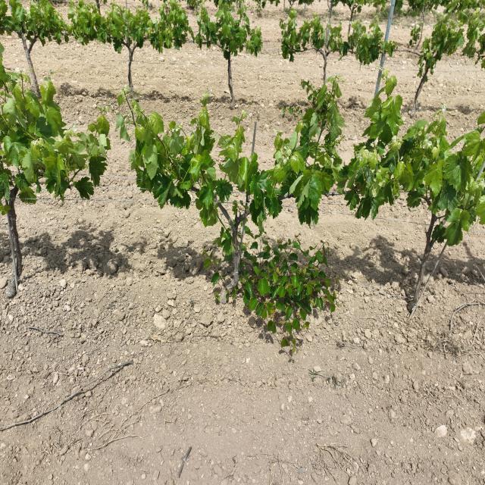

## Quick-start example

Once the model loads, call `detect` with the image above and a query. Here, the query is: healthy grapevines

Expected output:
[115,81,349,311]
[0,74,113,294]
[343,77,484,323]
